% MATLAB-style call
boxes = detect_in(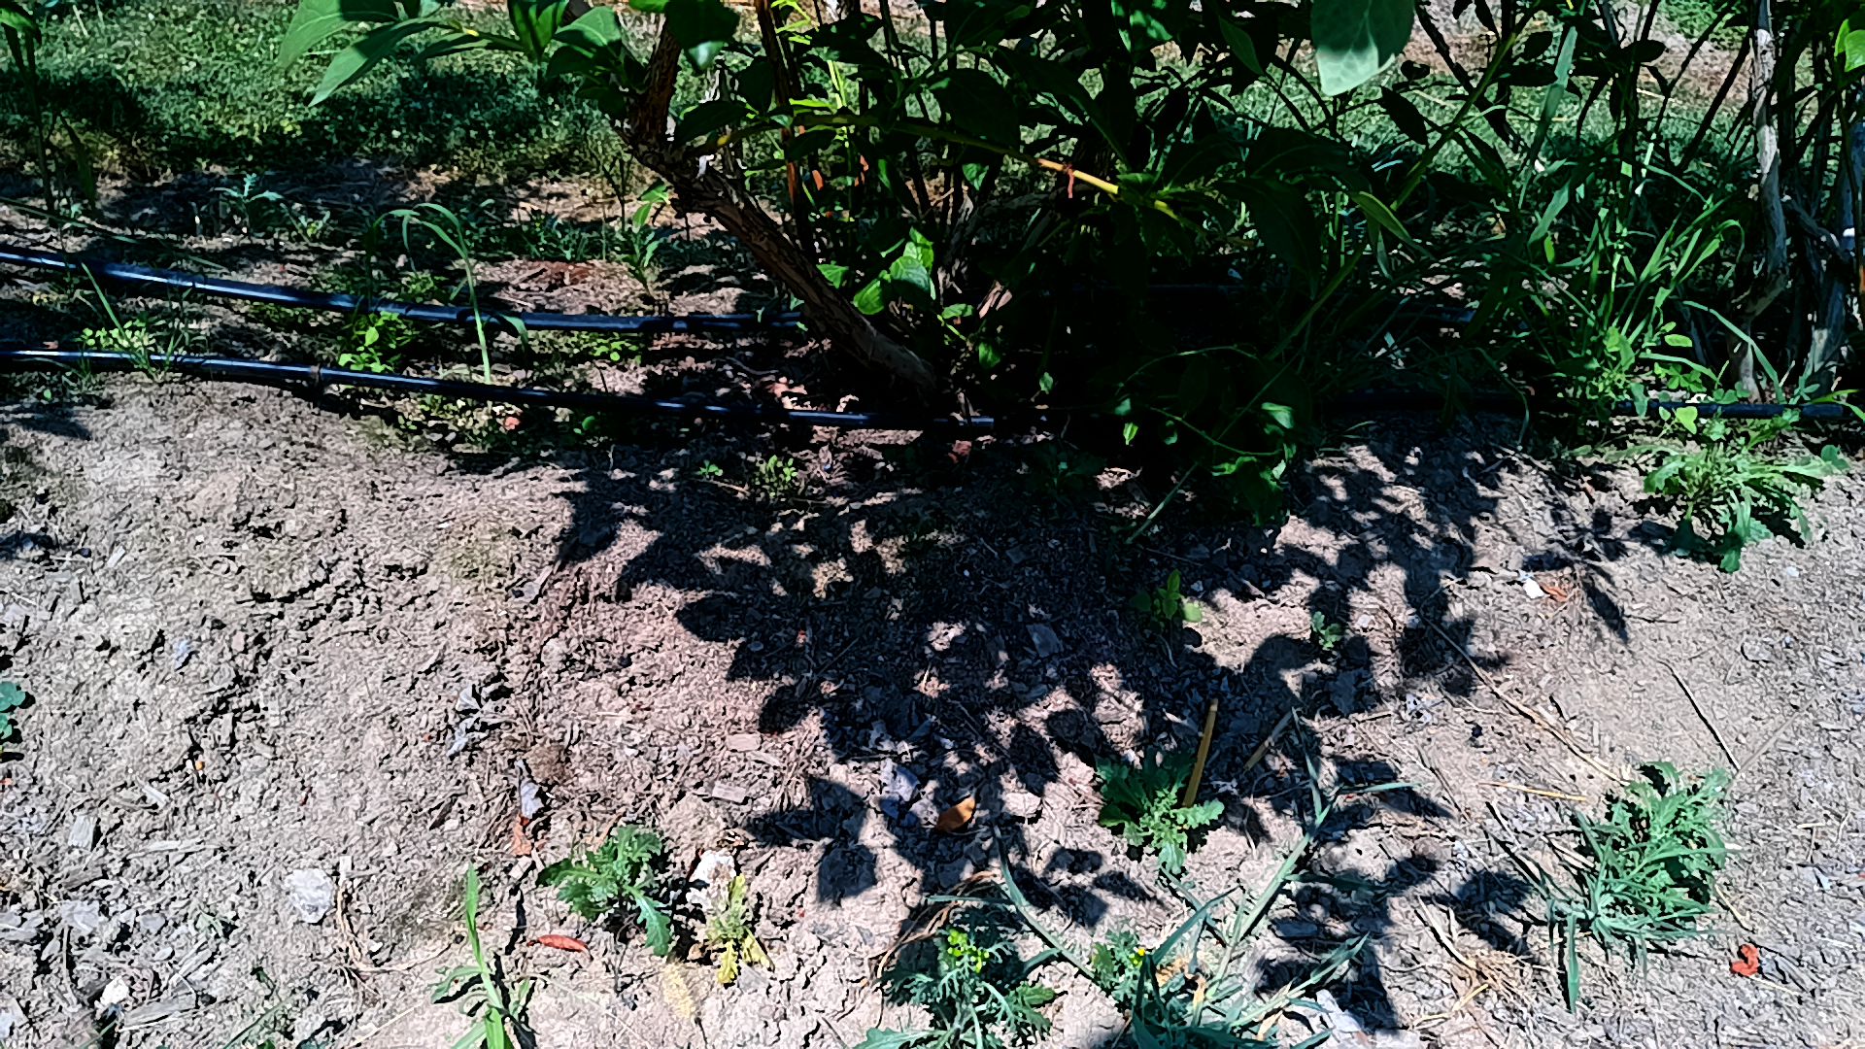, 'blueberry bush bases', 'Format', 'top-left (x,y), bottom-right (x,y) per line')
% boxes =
(657, 168), (1252, 532)
(1570, 221), (1865, 500)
